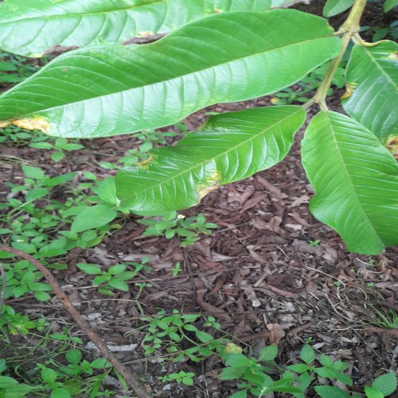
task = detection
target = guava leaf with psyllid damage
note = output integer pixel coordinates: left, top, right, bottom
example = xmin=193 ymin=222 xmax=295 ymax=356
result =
xmin=78 ymin=100 xmax=310 ymax=219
